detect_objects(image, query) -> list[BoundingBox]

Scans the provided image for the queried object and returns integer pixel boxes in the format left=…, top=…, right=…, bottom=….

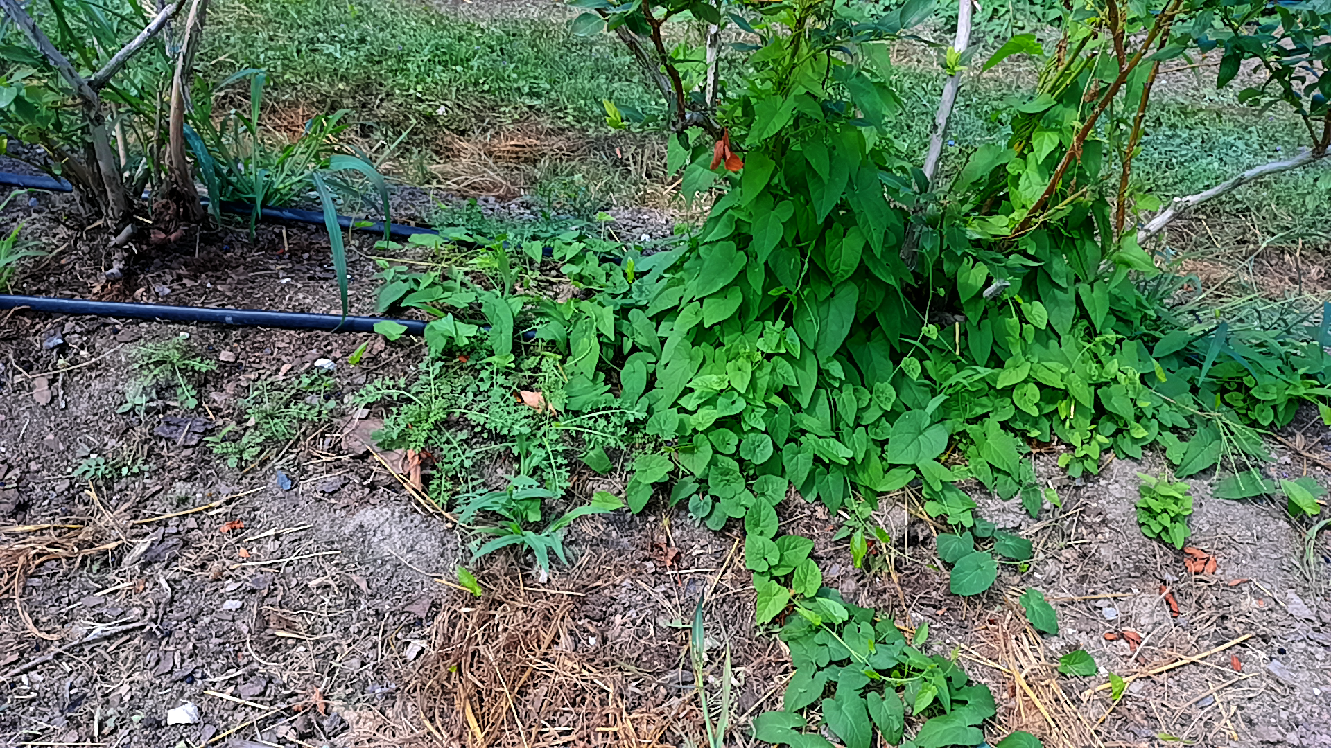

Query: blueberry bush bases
left=717, top=33, right=1189, bottom=424
left=8, top=77, right=222, bottom=318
